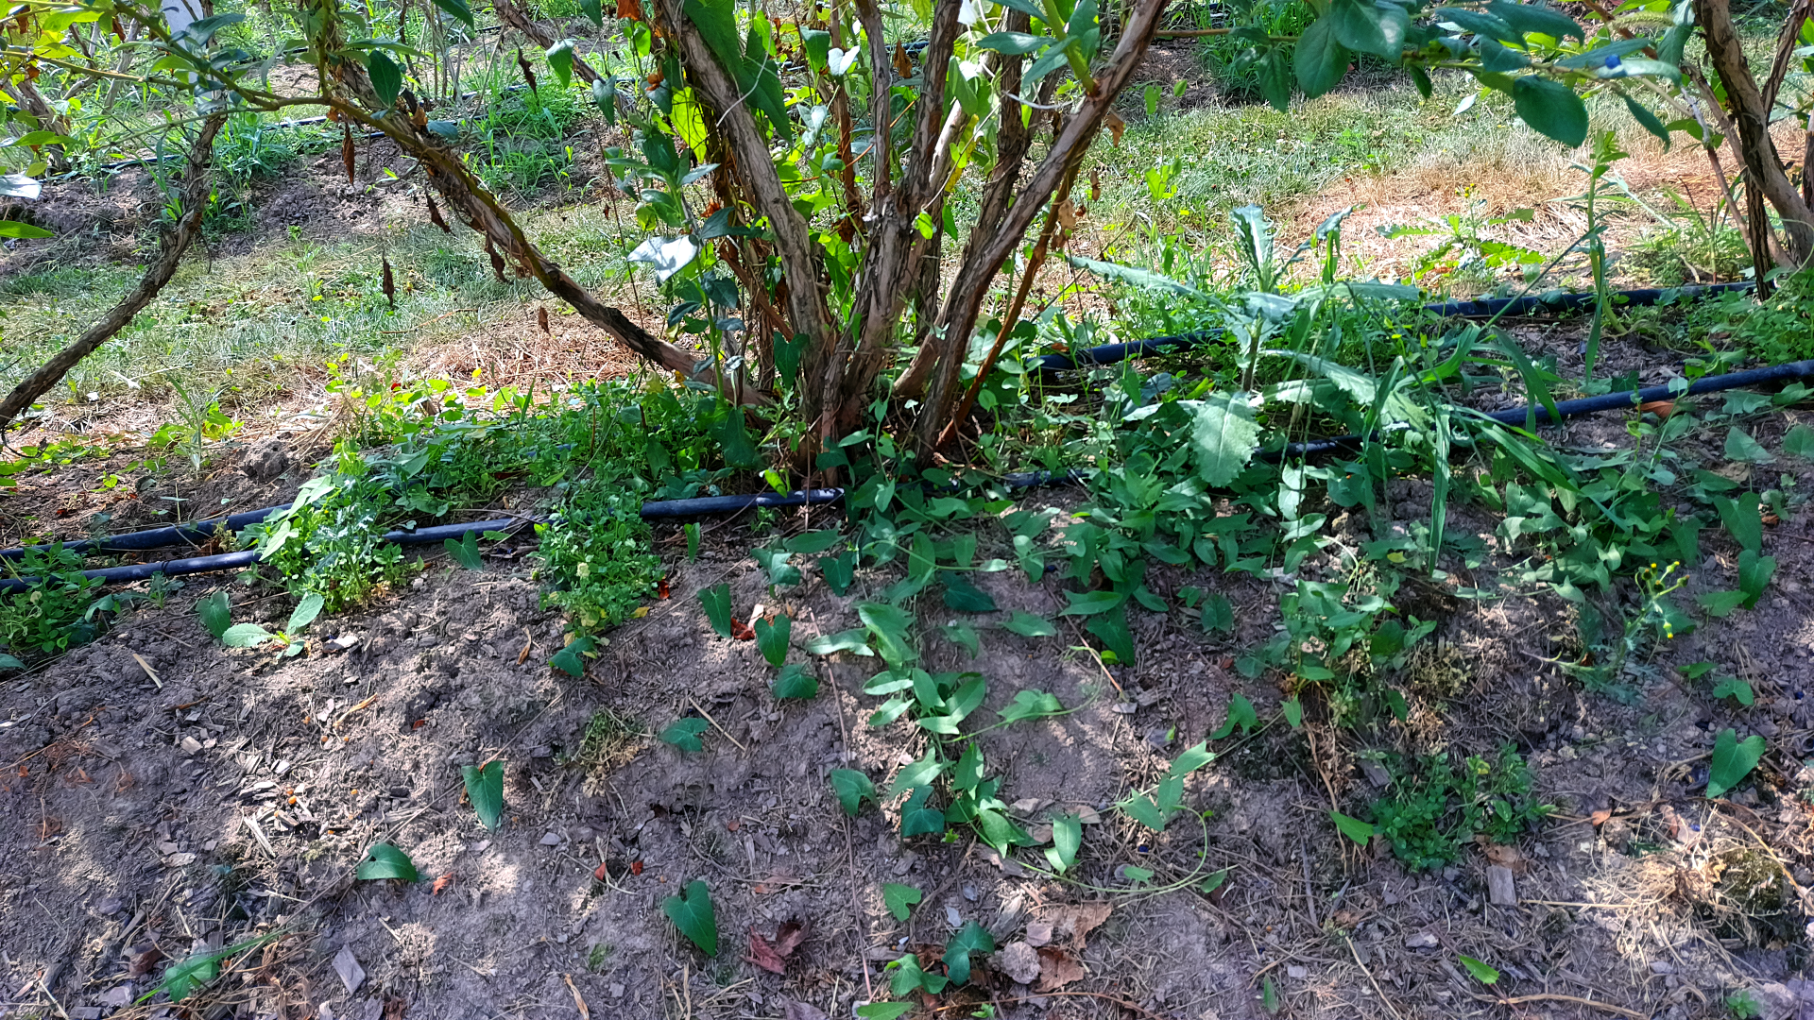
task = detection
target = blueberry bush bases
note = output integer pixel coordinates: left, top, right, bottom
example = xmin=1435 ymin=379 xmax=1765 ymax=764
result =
xmin=581 ymin=230 xmax=1083 ymax=586
xmin=1681 ymin=110 xmax=1814 ymax=484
